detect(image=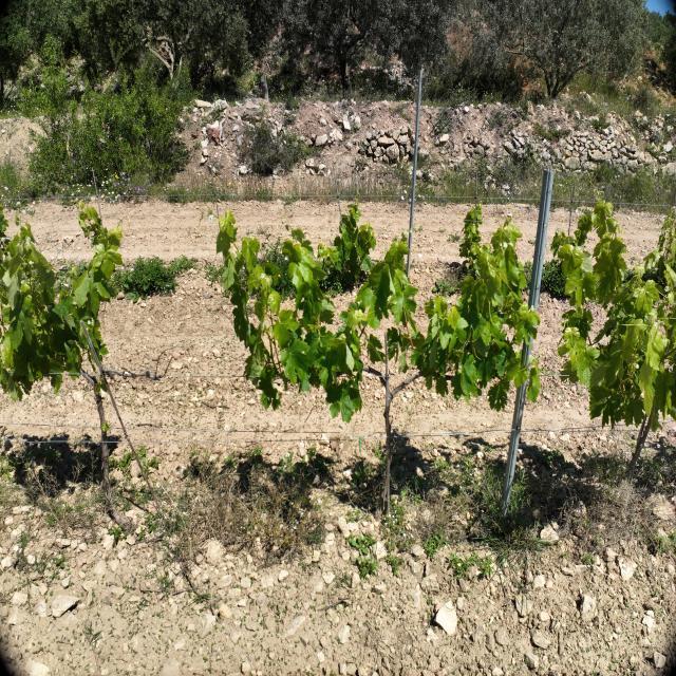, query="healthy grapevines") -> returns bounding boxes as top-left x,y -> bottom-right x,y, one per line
205,193 -> 549,542
548,186 -> 676,509
0,194 -> 142,550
